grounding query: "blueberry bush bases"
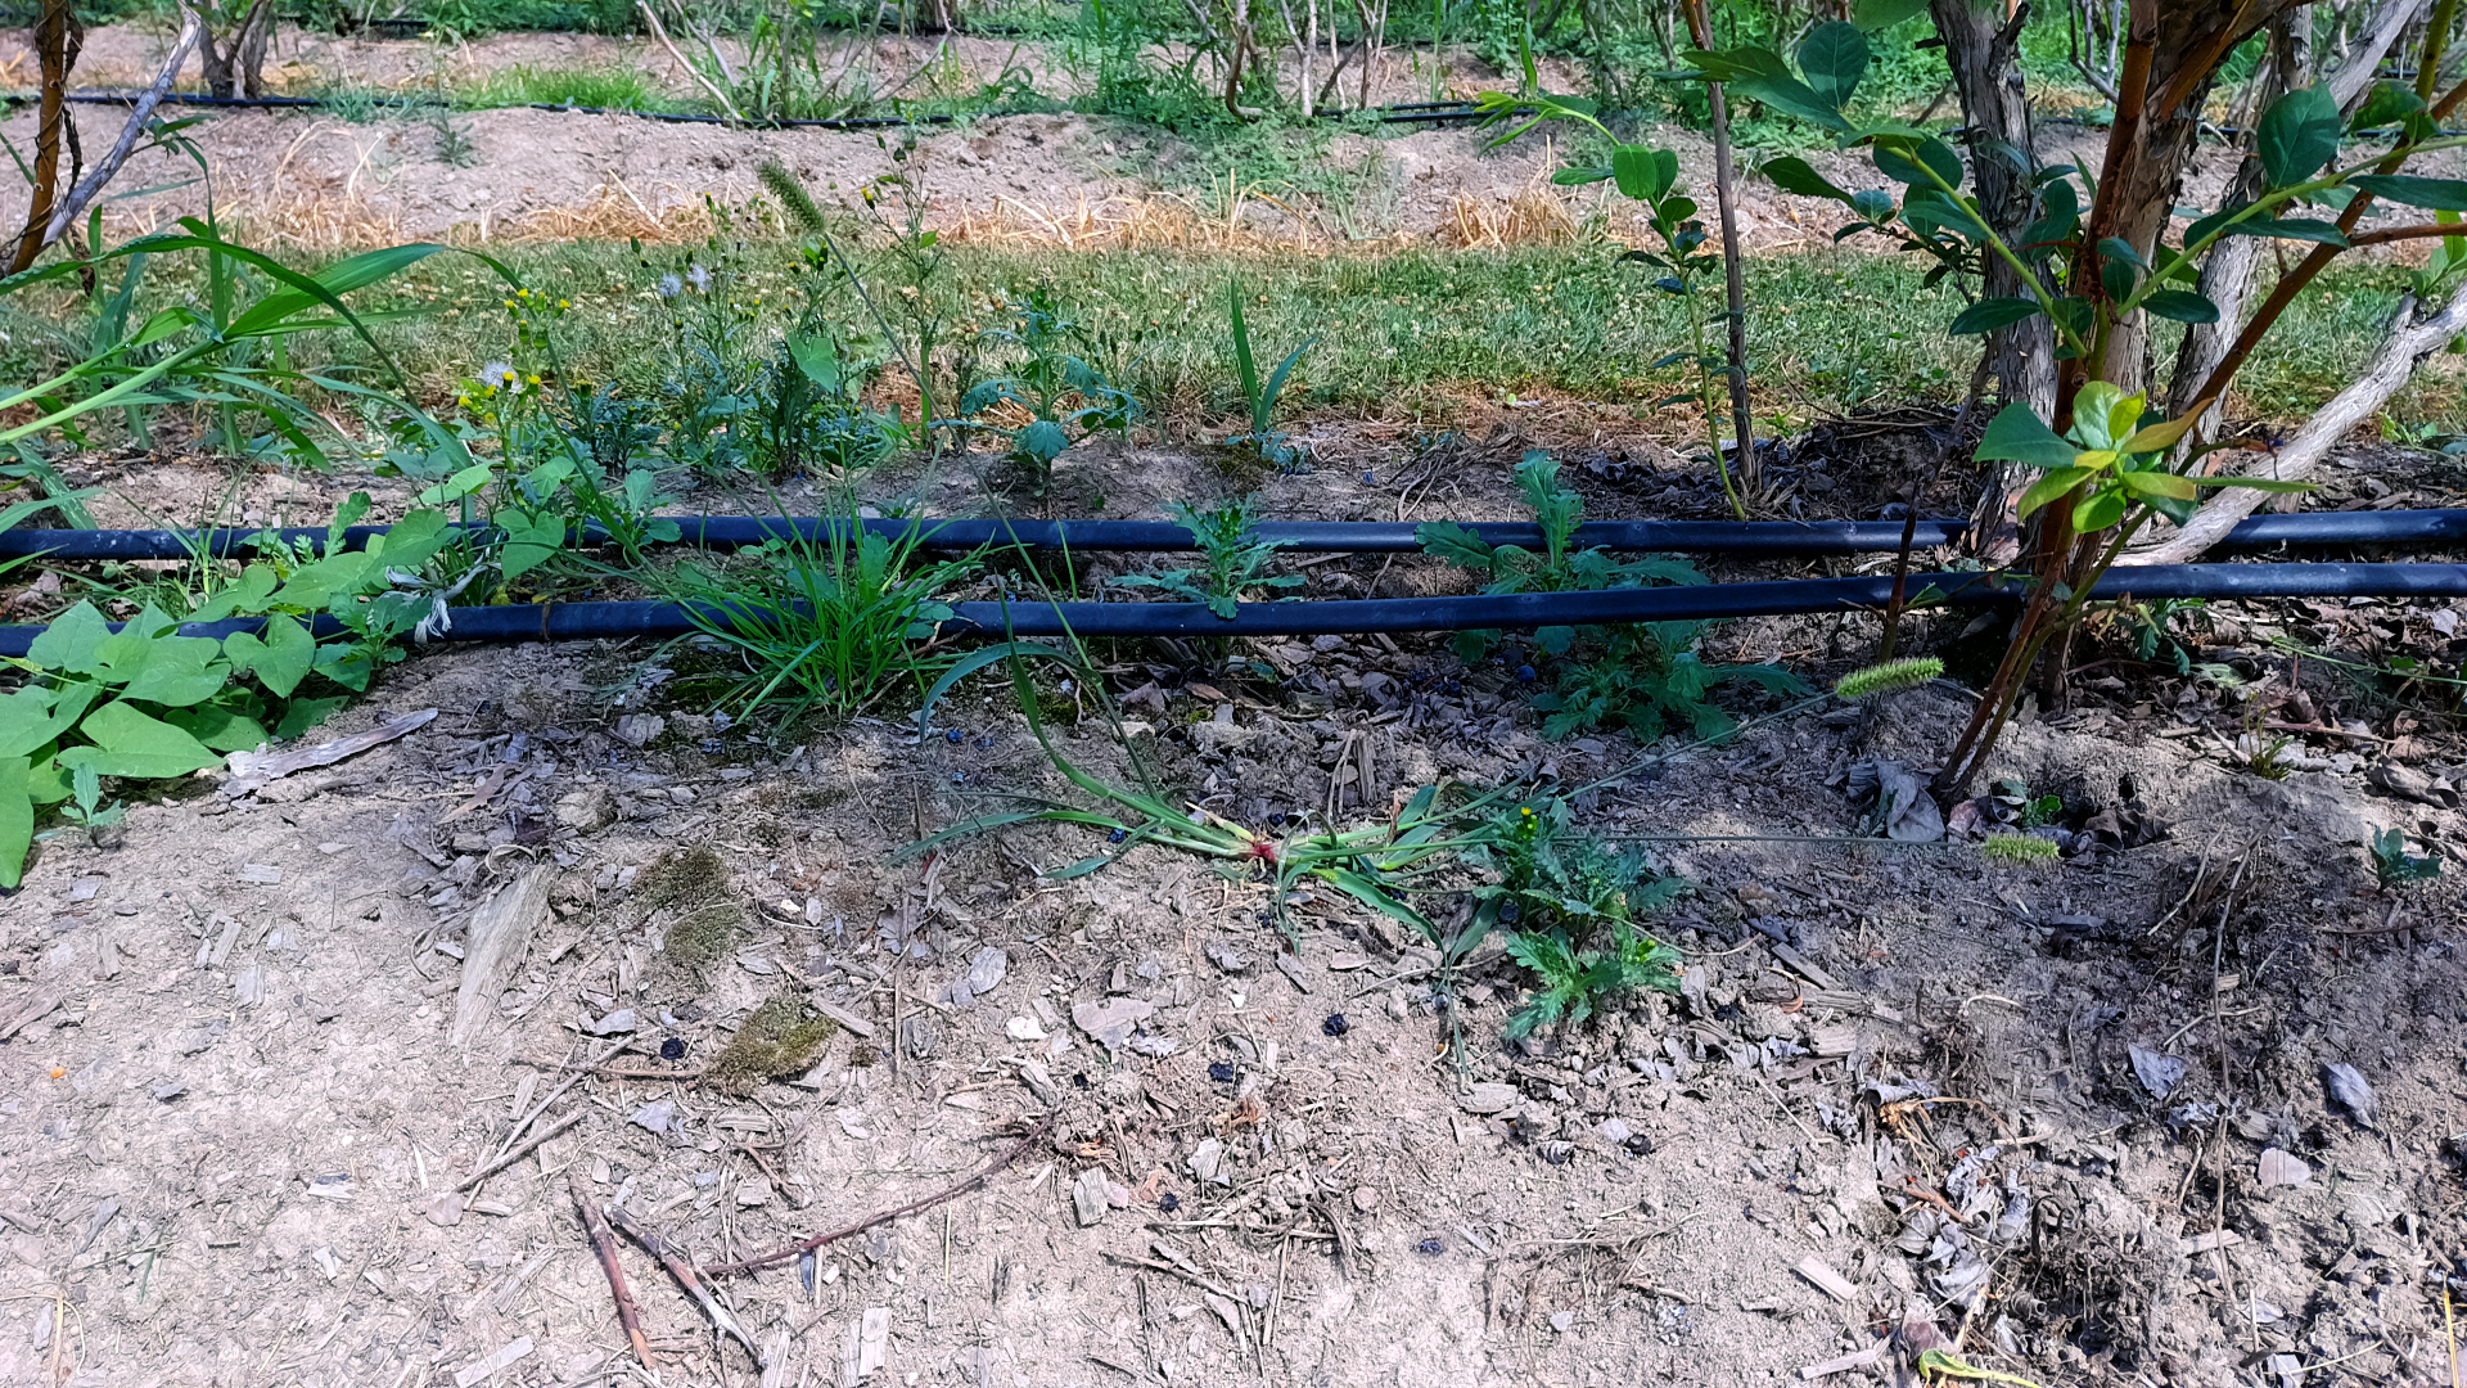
[1713,308,2373,770]
[640,36,892,170]
[878,0,1005,55]
[180,39,293,139]
[1156,37,1397,176]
